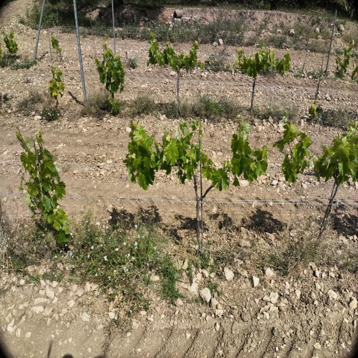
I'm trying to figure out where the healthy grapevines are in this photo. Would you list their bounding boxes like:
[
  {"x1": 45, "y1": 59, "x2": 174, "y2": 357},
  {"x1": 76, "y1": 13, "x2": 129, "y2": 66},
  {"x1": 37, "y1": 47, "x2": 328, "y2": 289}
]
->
[
  {"x1": 12, "y1": 122, "x2": 77, "y2": 253},
  {"x1": 121, "y1": 114, "x2": 271, "y2": 260},
  {"x1": 272, "y1": 117, "x2": 358, "y2": 254}
]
